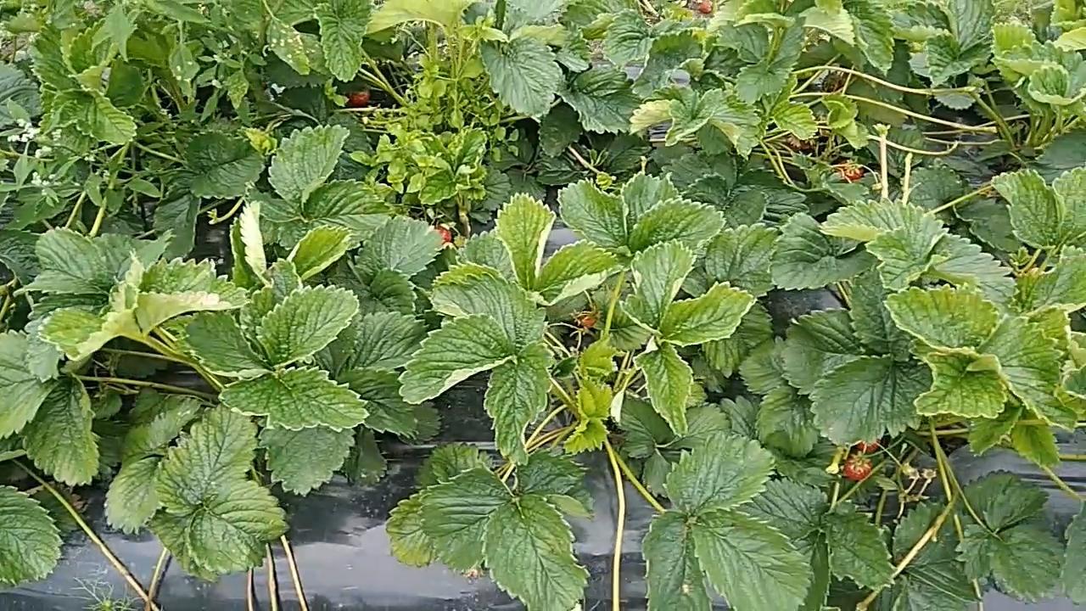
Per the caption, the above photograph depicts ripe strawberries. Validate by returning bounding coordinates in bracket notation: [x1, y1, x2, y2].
[432, 224, 457, 247]
[347, 85, 369, 109]
[839, 158, 859, 181]
[842, 451, 873, 483]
